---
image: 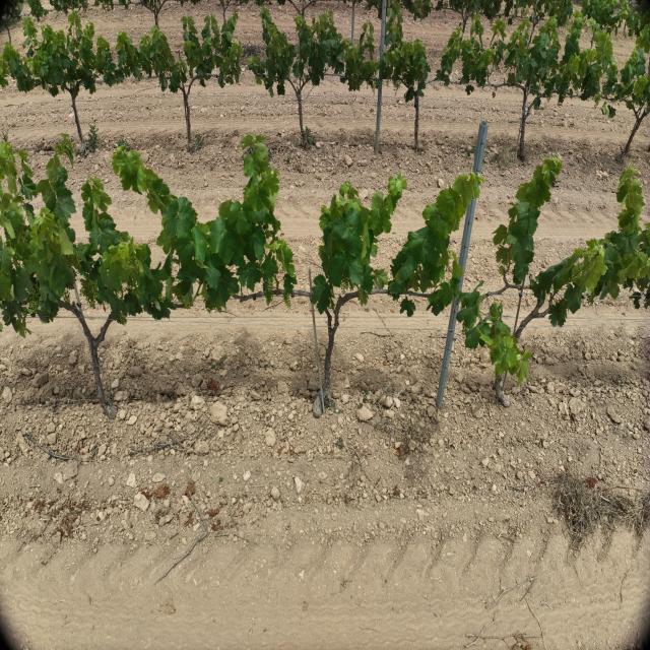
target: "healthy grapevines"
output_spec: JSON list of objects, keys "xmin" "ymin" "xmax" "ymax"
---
[
  {"xmin": 0, "ymin": 136, "xmax": 222, "ymax": 433},
  {"xmin": 460, "ymin": 156, "xmax": 649, "ymax": 425},
  {"xmin": 212, "ymin": 133, "xmax": 474, "ymax": 428}
]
